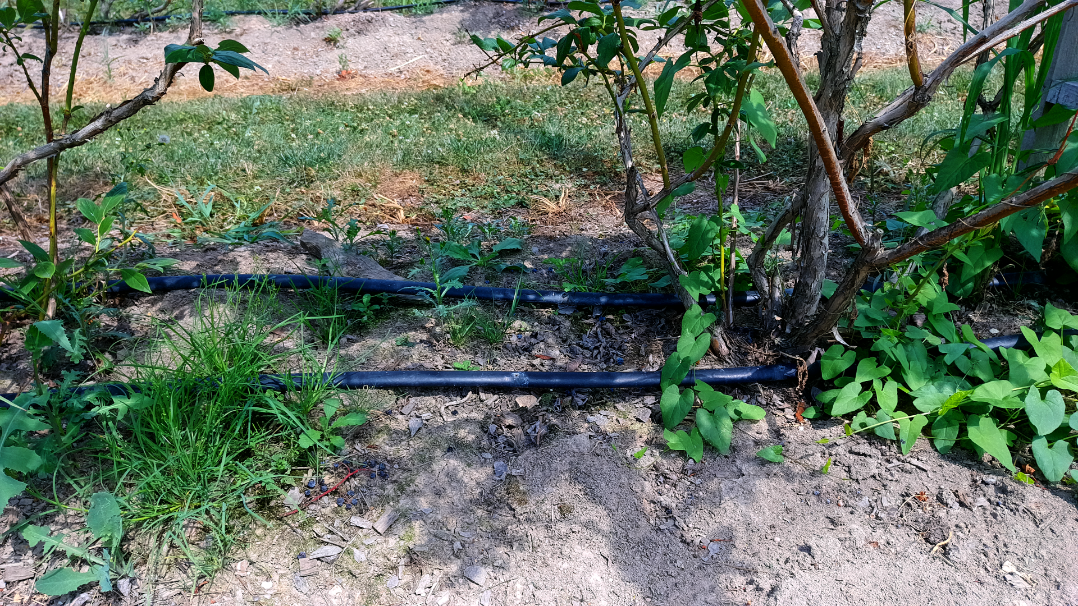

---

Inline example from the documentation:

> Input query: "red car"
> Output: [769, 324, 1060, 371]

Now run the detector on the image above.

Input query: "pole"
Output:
[1026, 2, 1077, 180]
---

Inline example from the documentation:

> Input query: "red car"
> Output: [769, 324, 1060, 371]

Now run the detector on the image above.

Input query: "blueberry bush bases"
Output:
[602, 181, 977, 462]
[4, 173, 120, 402]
